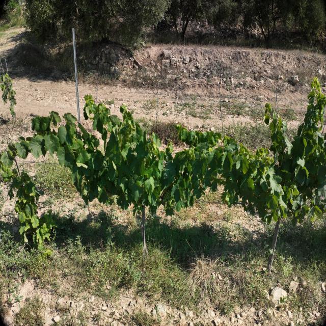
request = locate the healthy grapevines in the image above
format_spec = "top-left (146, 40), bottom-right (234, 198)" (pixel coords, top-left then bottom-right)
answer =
top-left (52, 98), bottom-right (224, 266)
top-left (223, 83), bottom-right (326, 285)
top-left (0, 143), bottom-right (50, 260)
